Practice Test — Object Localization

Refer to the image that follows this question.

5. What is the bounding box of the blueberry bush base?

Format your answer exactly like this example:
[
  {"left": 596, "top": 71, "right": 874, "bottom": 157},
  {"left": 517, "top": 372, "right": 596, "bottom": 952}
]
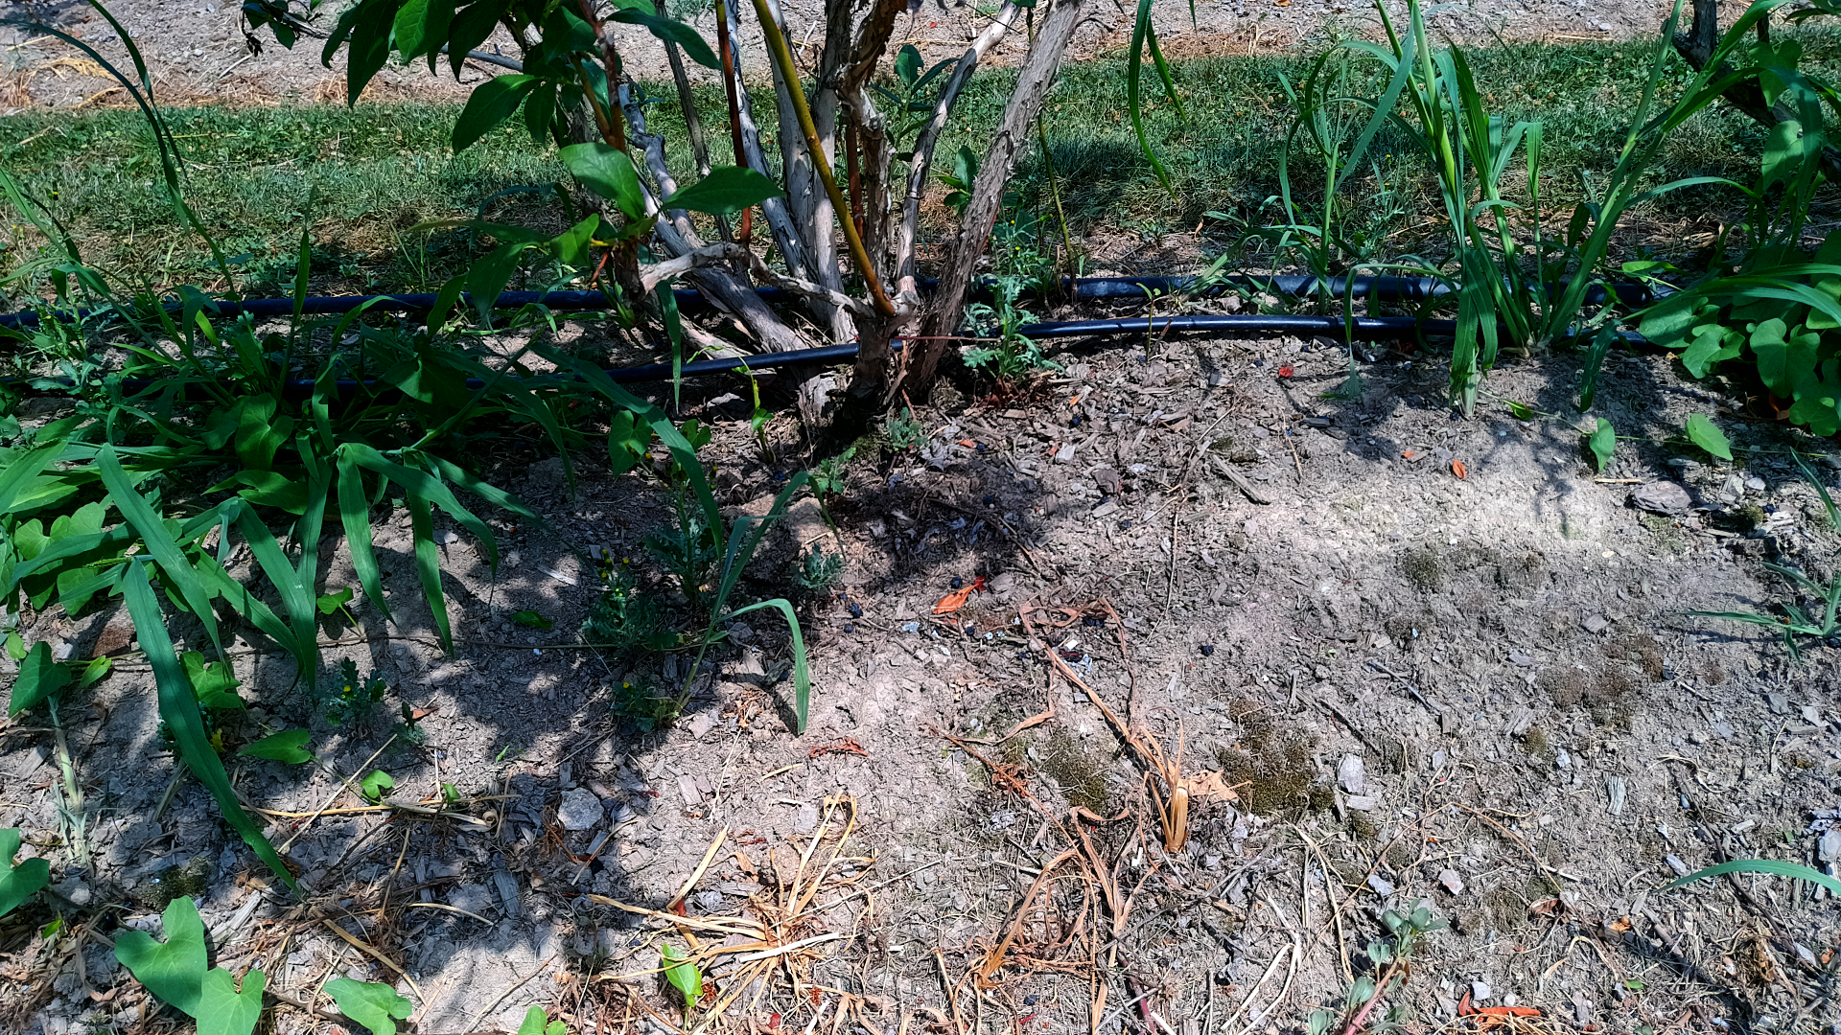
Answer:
[{"left": 633, "top": 140, "right": 1051, "bottom": 480}]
